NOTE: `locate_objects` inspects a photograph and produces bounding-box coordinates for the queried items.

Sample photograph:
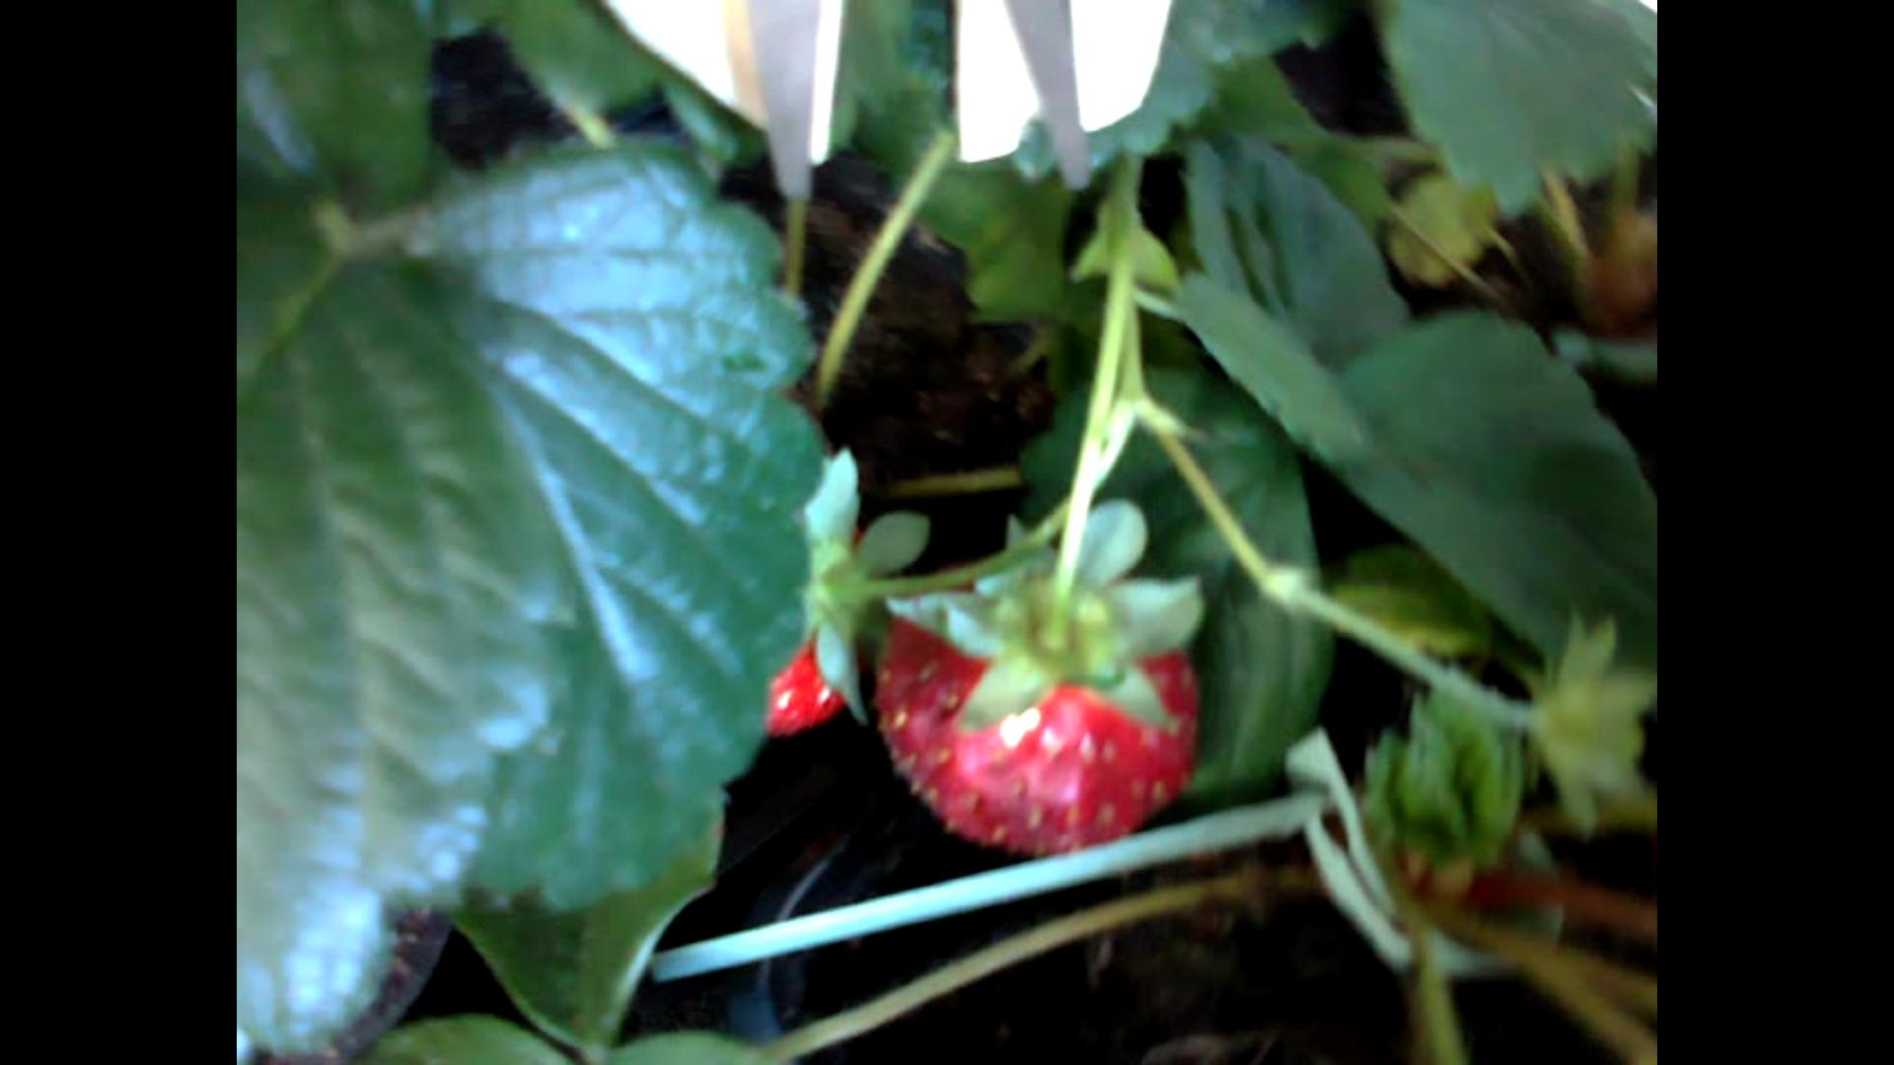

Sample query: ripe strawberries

[681,425,909,786]
[889,532,1233,851]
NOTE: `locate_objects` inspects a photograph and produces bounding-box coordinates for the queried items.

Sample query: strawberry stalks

[1039,206,1169,747]
[826,526,986,623]
[1395,651,1571,751]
